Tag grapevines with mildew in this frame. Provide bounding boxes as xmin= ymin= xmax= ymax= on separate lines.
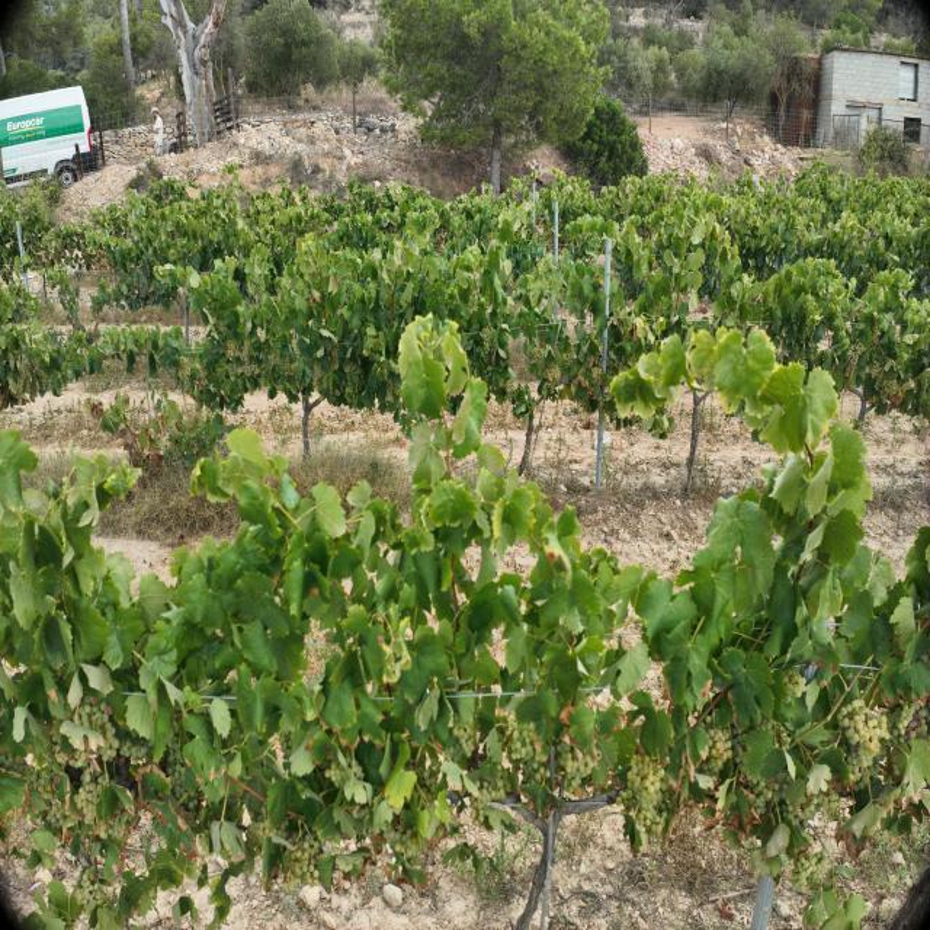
xmin=343 ymin=496 xmax=901 ymax=930
xmin=0 ymin=472 xmax=343 ymax=921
